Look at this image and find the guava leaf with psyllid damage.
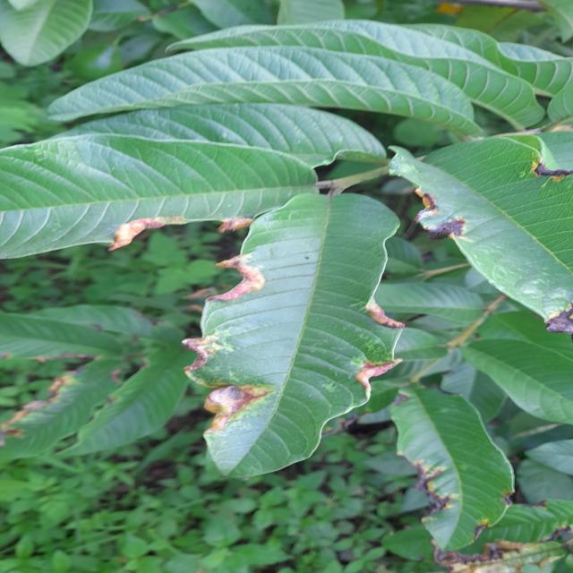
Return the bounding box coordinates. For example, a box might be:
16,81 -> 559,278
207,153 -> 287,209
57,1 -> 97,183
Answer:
185,183 -> 408,496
